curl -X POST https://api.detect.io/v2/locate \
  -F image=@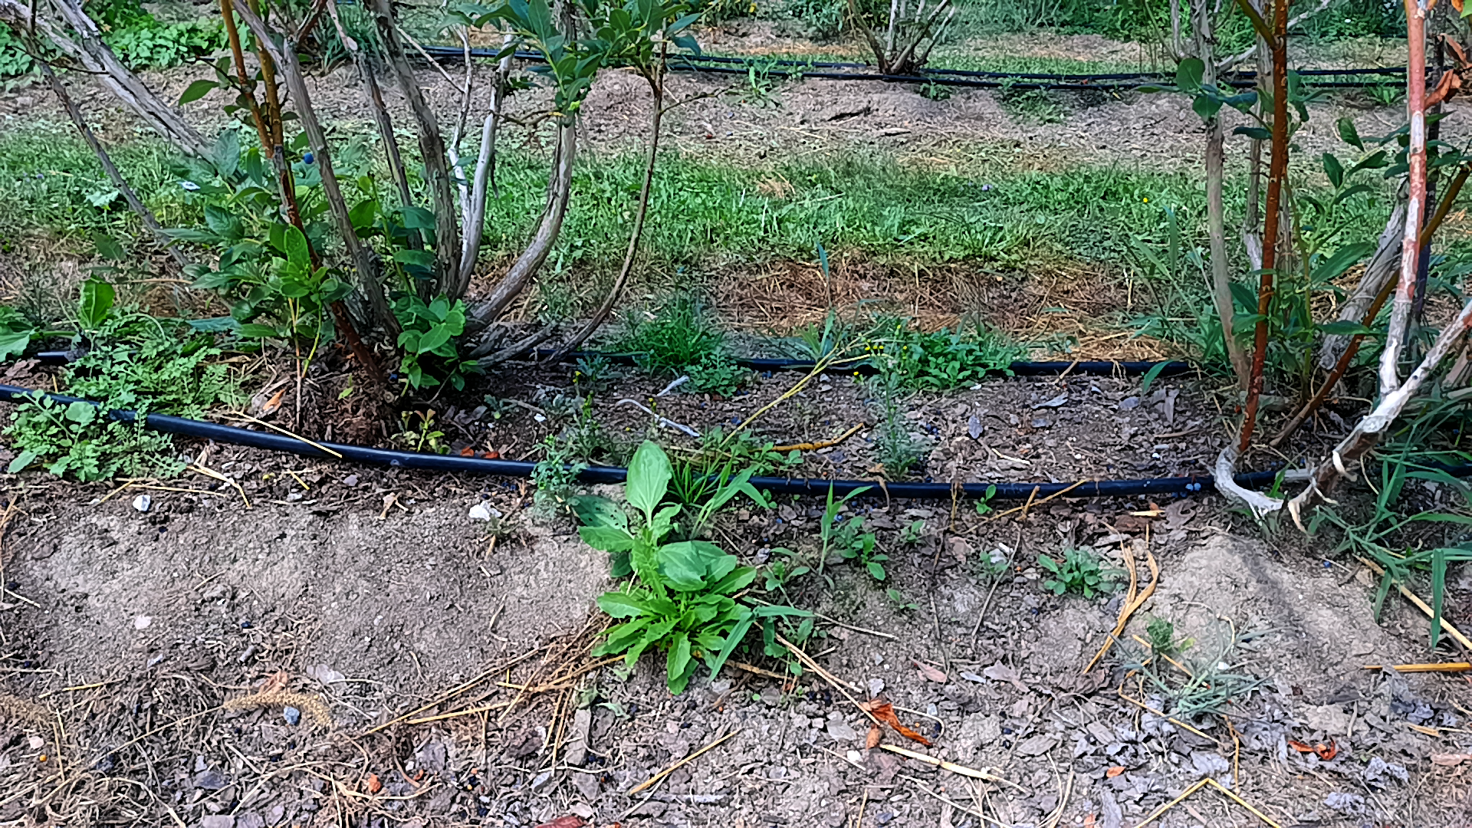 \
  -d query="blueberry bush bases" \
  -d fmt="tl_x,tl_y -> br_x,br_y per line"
1174,208 -> 1472,572
265,181 -> 626,485
849,26 -> 947,94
